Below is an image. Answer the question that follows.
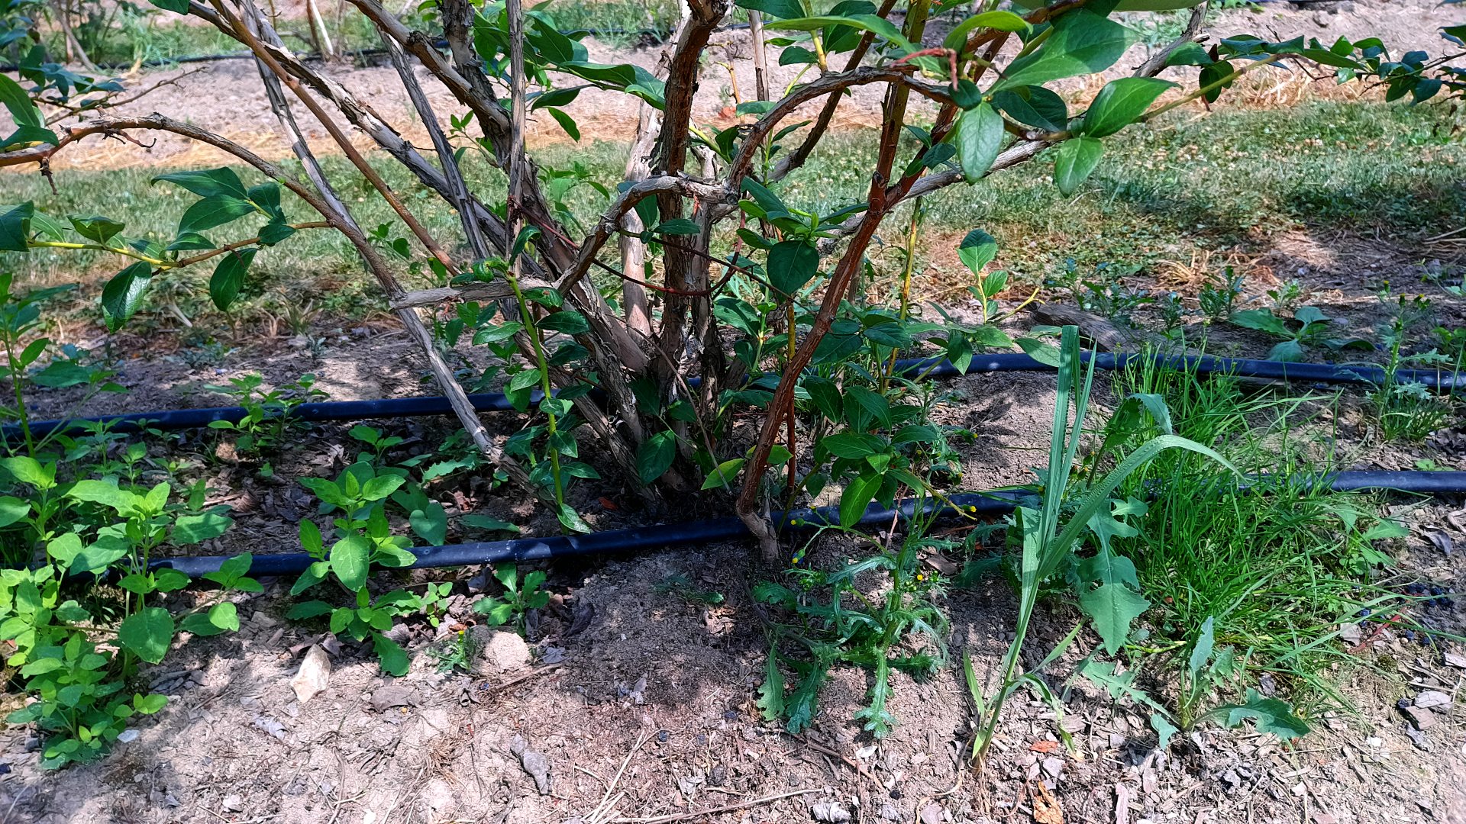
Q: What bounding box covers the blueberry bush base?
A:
[398,262,902,614]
